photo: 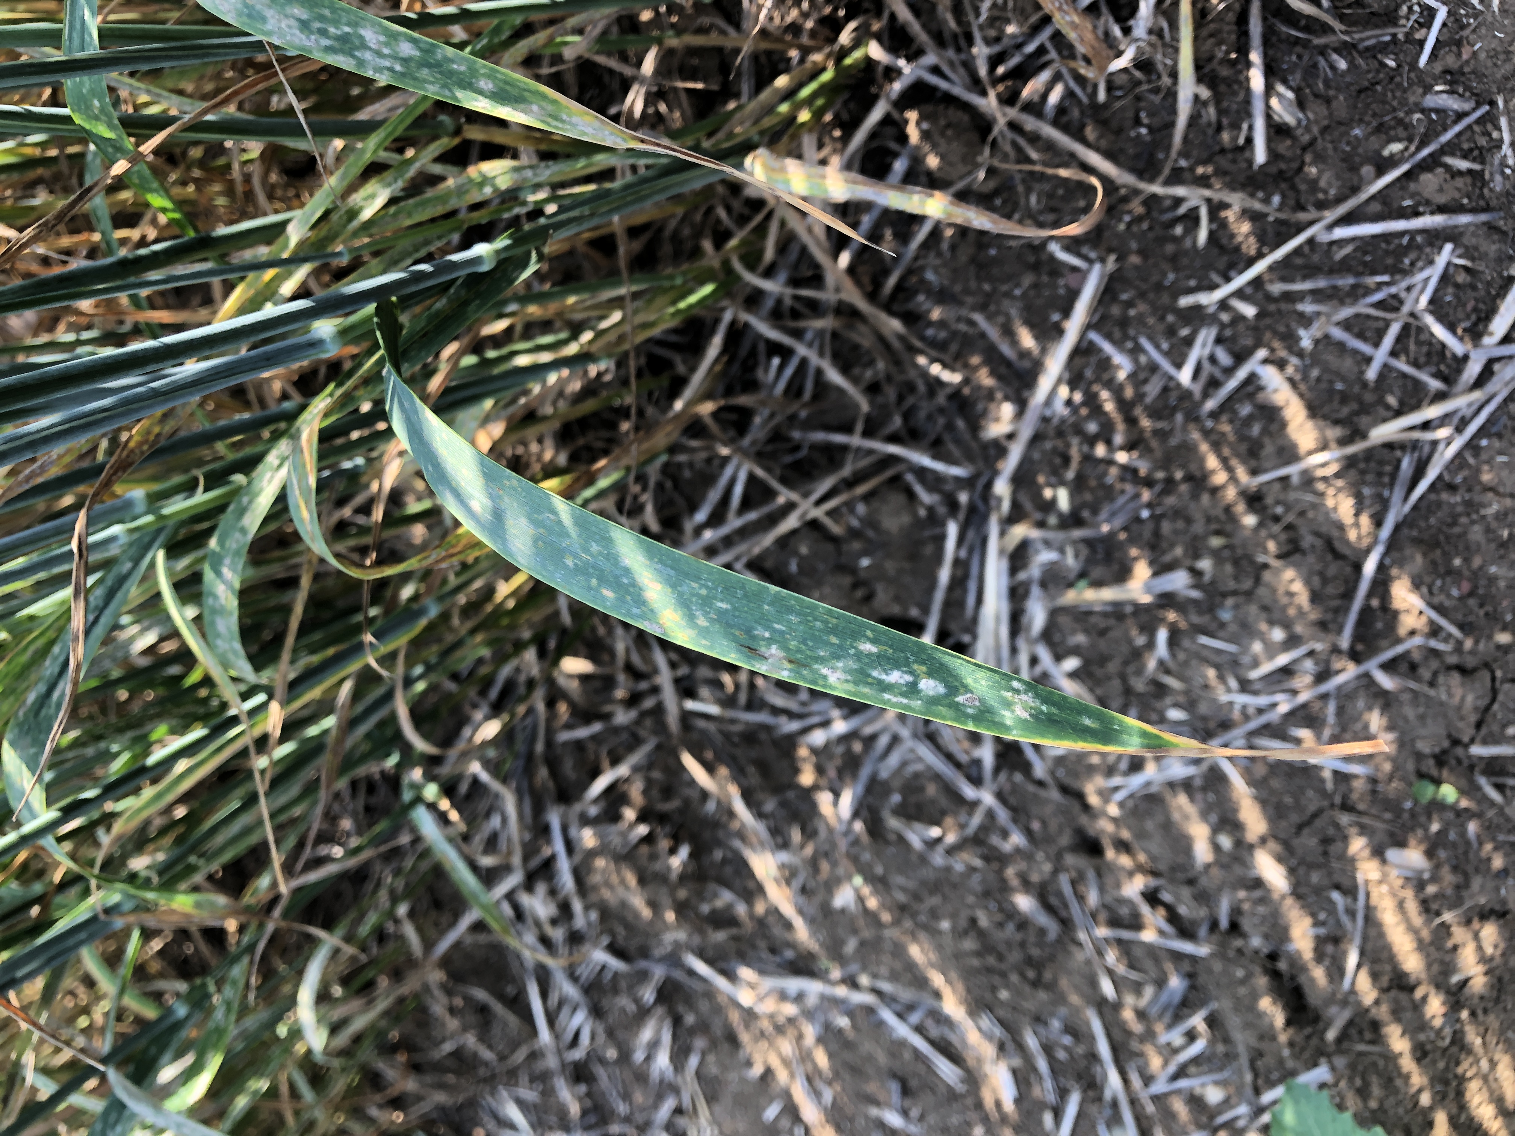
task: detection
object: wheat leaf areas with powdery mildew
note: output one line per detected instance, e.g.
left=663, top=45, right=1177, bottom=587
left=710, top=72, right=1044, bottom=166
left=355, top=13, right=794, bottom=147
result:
left=479, top=495, right=1126, bottom=779
left=197, top=470, right=285, bottom=687
left=228, top=0, right=617, bottom=145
